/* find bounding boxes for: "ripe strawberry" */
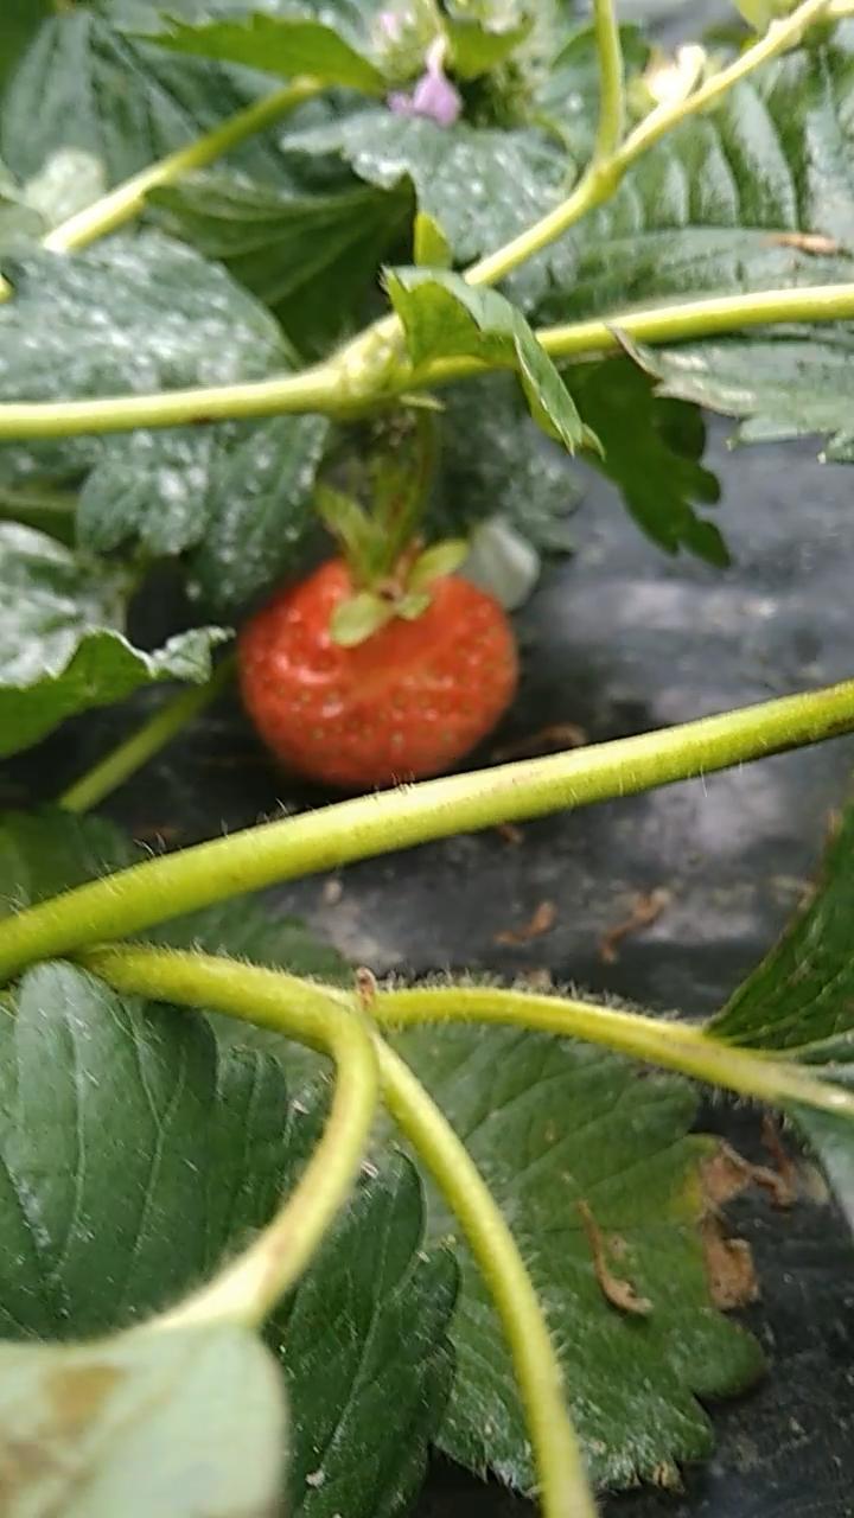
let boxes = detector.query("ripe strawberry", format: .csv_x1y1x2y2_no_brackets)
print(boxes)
241,560,540,791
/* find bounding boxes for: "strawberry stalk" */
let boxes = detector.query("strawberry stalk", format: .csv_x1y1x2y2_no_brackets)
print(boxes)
321,348,491,653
